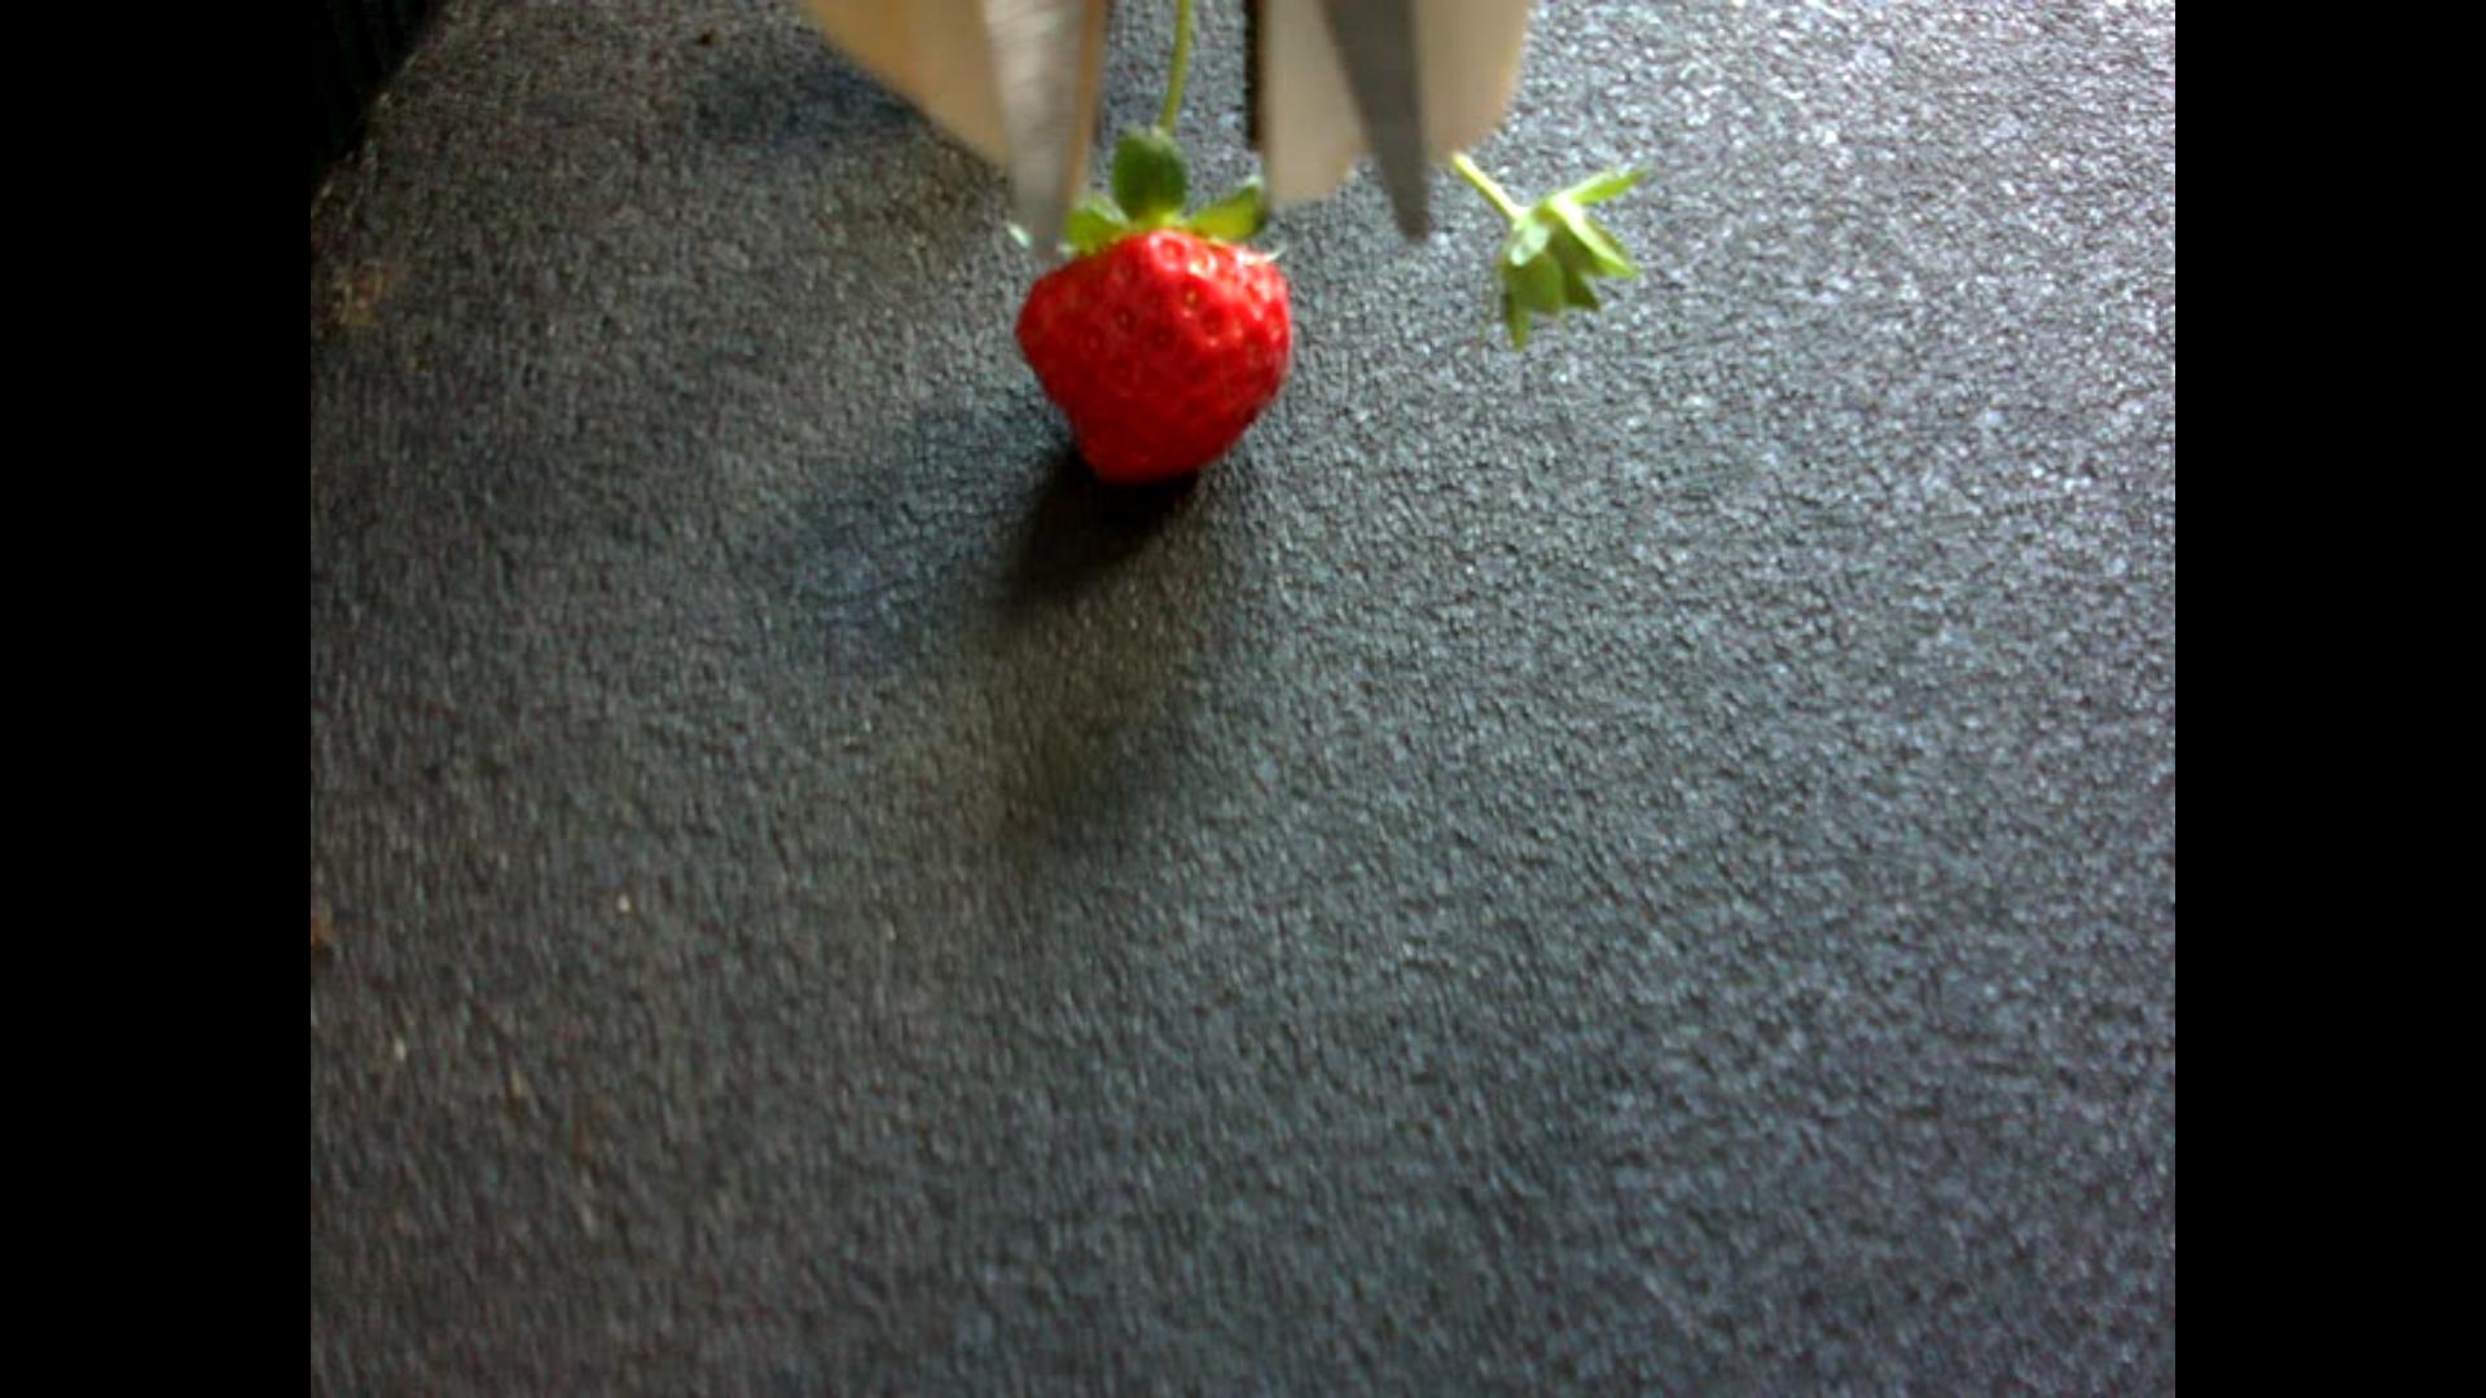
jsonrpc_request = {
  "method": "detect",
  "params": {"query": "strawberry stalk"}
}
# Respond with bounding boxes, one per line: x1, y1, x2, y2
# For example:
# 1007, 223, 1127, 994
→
1107, 0, 1218, 259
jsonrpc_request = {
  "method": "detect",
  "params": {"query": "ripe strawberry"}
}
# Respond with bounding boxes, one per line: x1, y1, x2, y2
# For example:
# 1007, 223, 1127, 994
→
978, 200, 1347, 477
